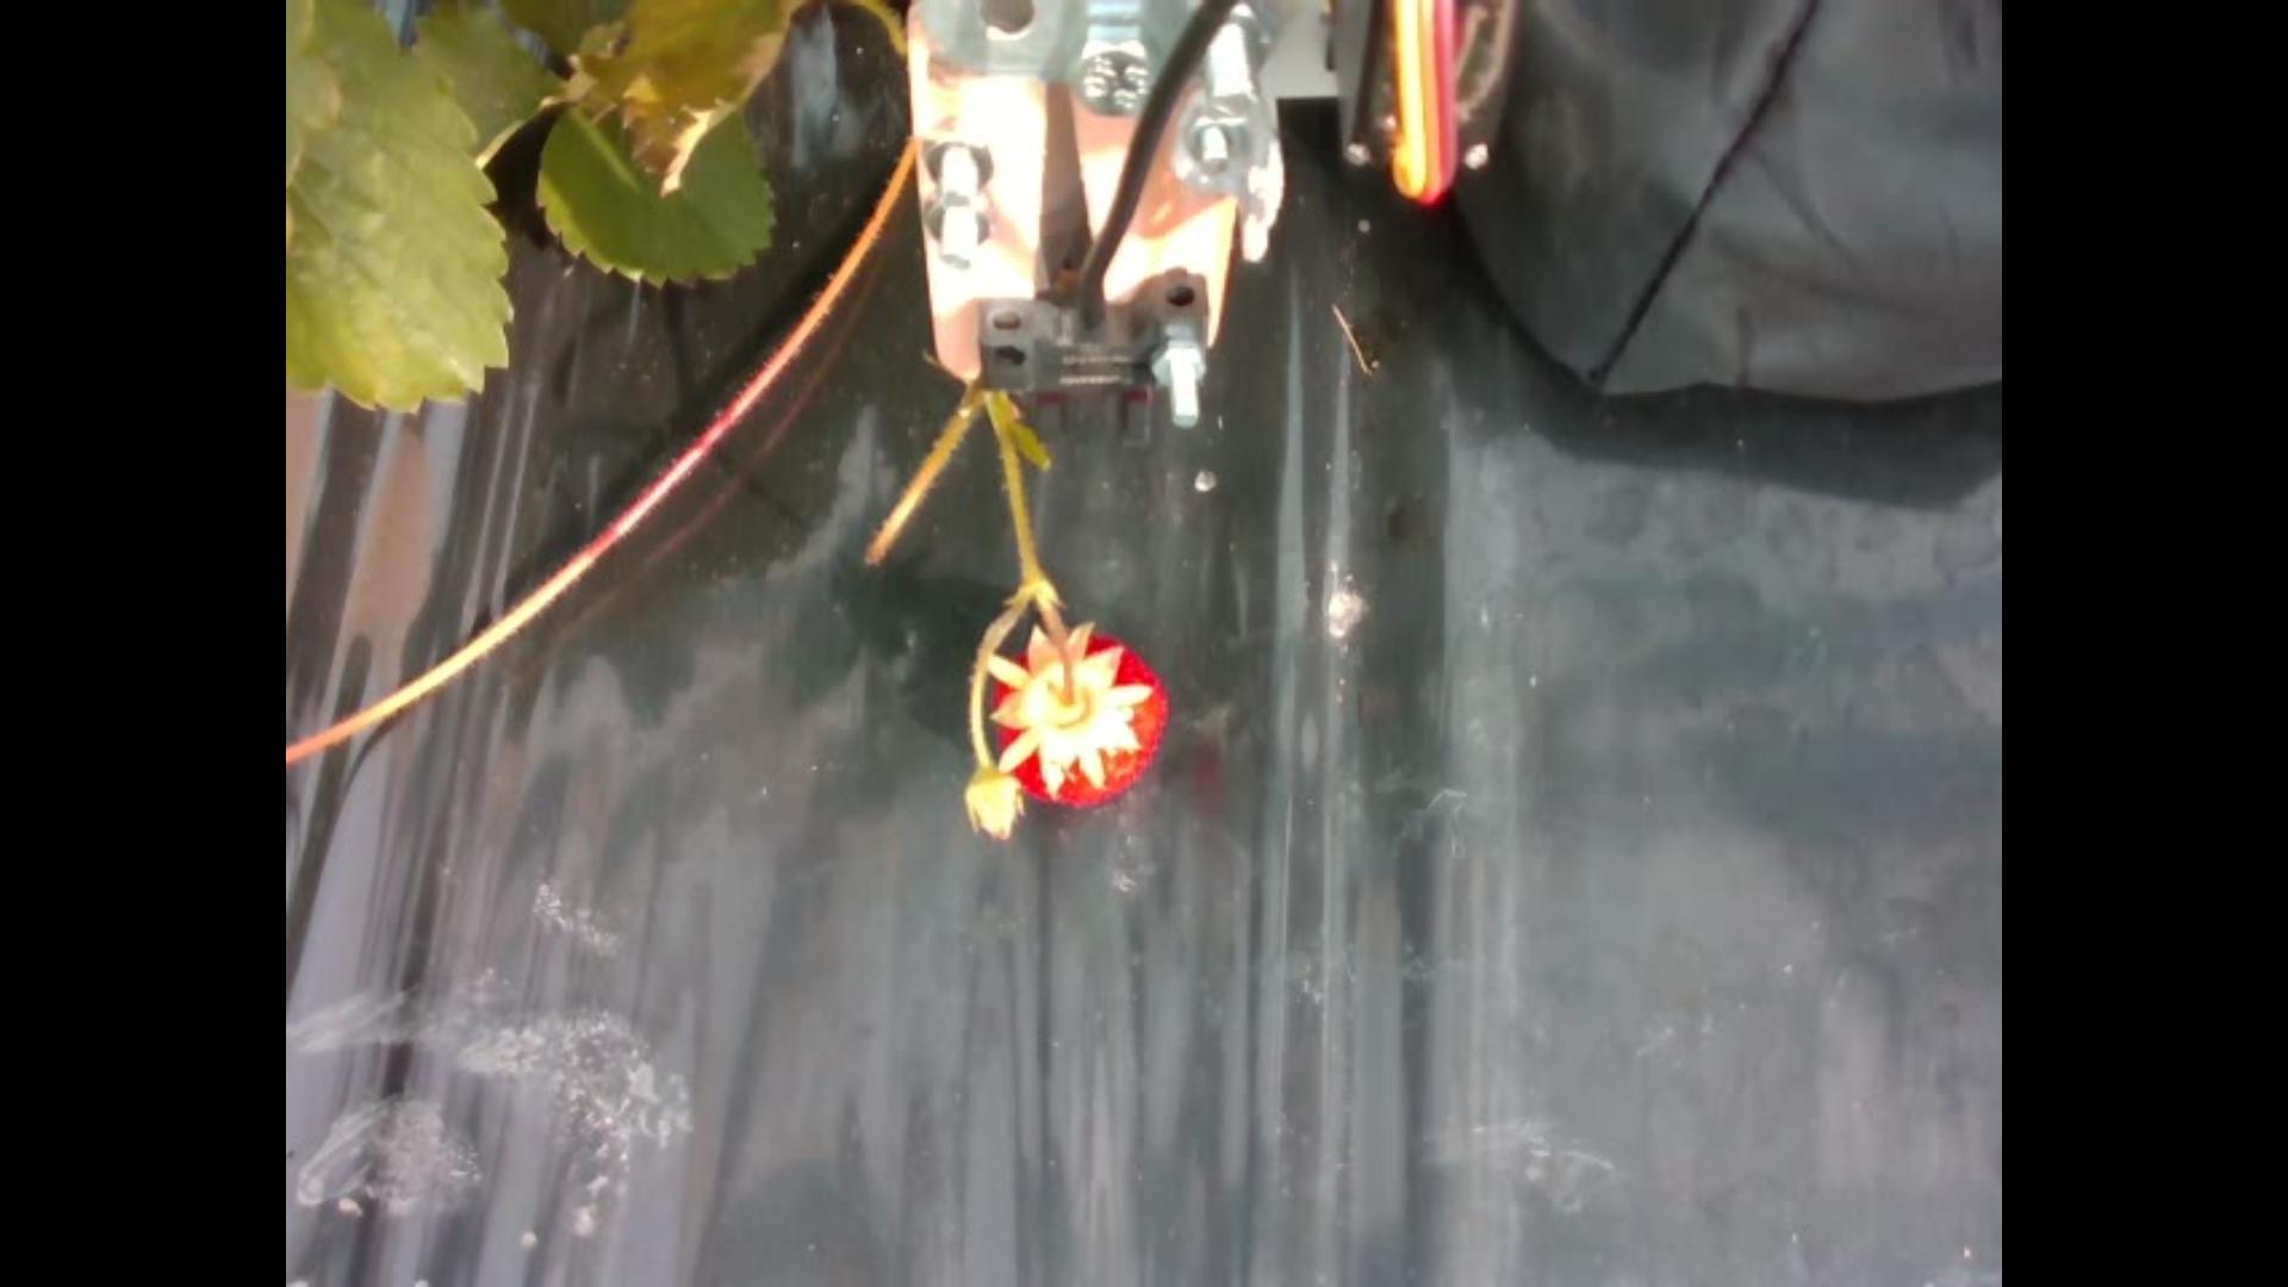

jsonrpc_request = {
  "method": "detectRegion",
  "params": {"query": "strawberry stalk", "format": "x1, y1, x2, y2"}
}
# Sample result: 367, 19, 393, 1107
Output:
980, 428, 1094, 722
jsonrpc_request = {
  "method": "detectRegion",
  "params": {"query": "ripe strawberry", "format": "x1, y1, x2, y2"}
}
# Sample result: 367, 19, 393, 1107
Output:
972, 622, 1190, 826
